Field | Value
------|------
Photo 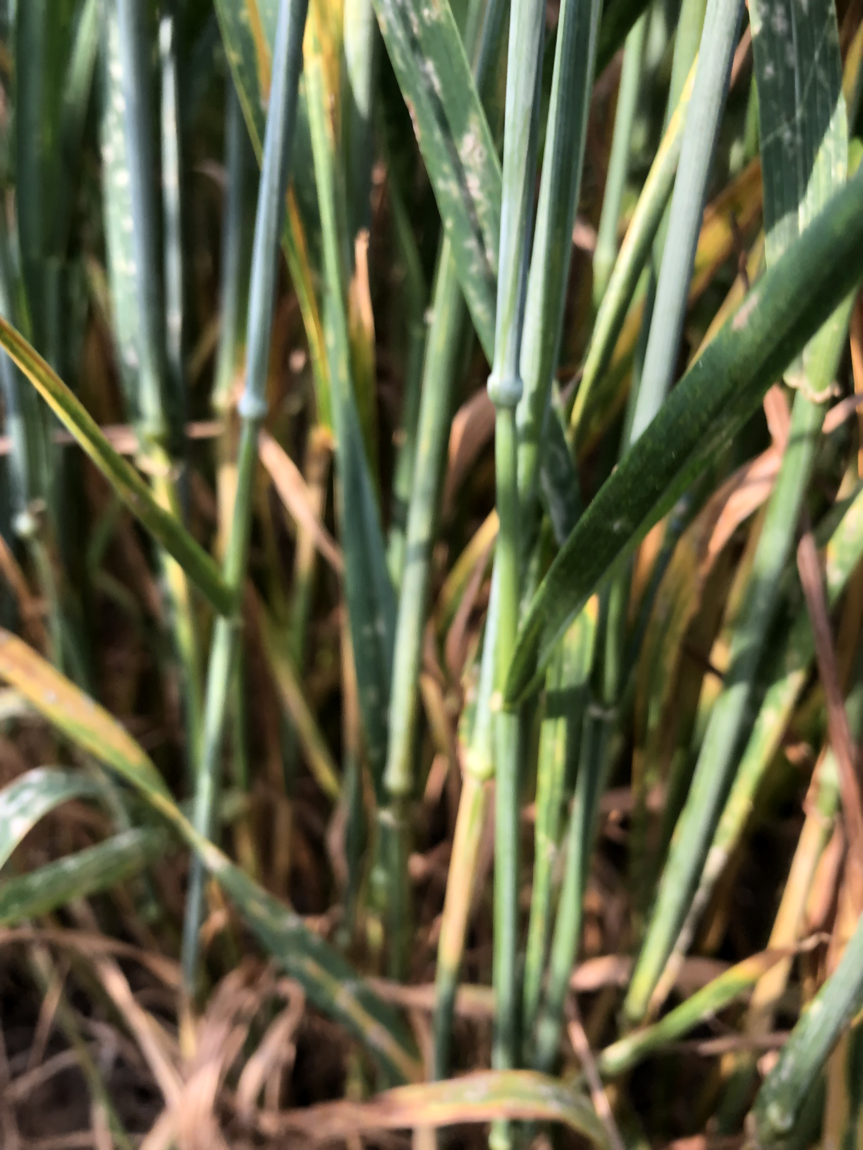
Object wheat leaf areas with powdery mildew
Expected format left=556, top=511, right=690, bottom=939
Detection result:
left=376, top=0, right=501, bottom=338
left=747, top=2, right=863, bottom=185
